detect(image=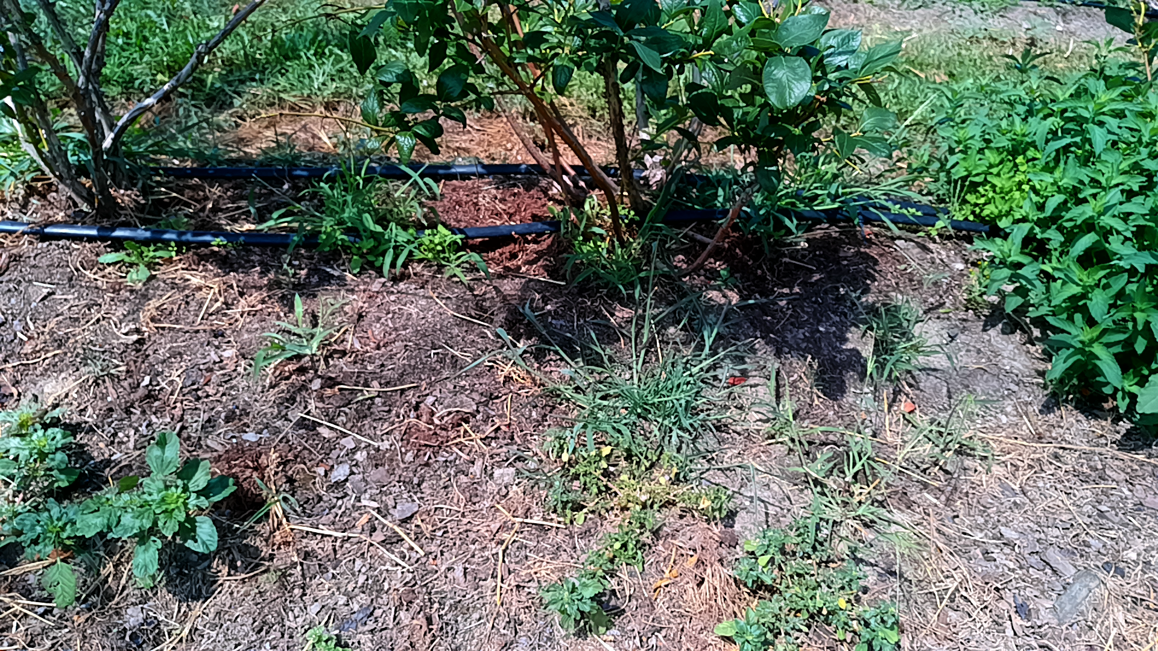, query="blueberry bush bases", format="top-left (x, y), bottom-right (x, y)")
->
top-left (7, 92), bottom-right (174, 248)
top-left (517, 143), bottom-right (751, 306)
